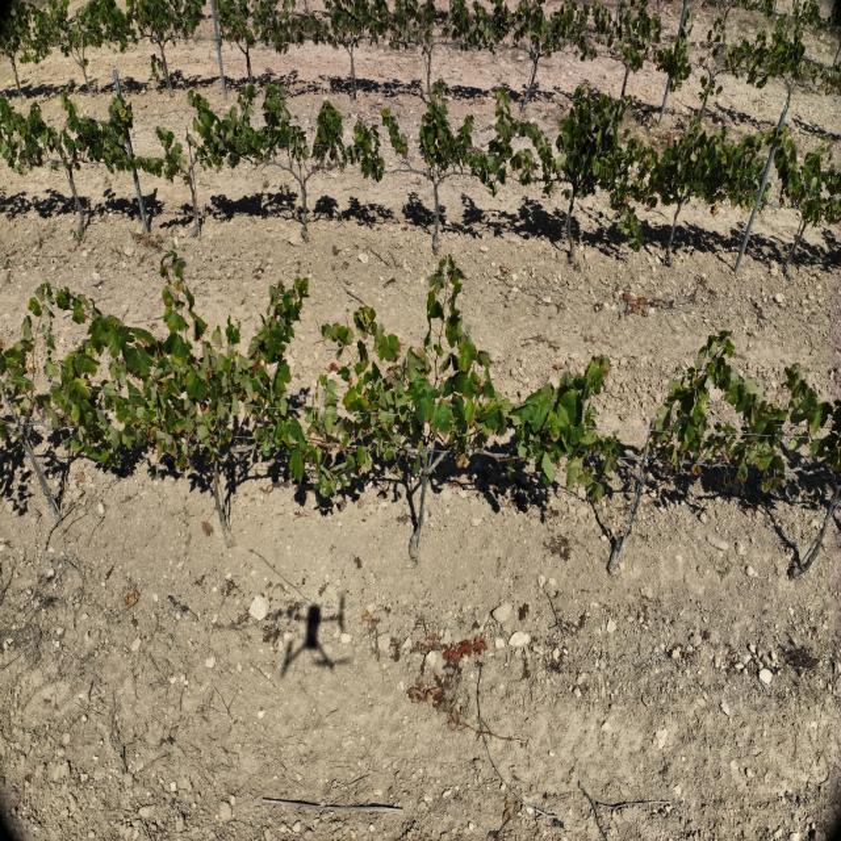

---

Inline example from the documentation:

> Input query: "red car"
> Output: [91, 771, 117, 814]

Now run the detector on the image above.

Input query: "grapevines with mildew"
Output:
[319, 255, 544, 569]
[0, 268, 74, 535]
[511, 323, 738, 586]
[74, 268, 315, 560]
[739, 344, 841, 597]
